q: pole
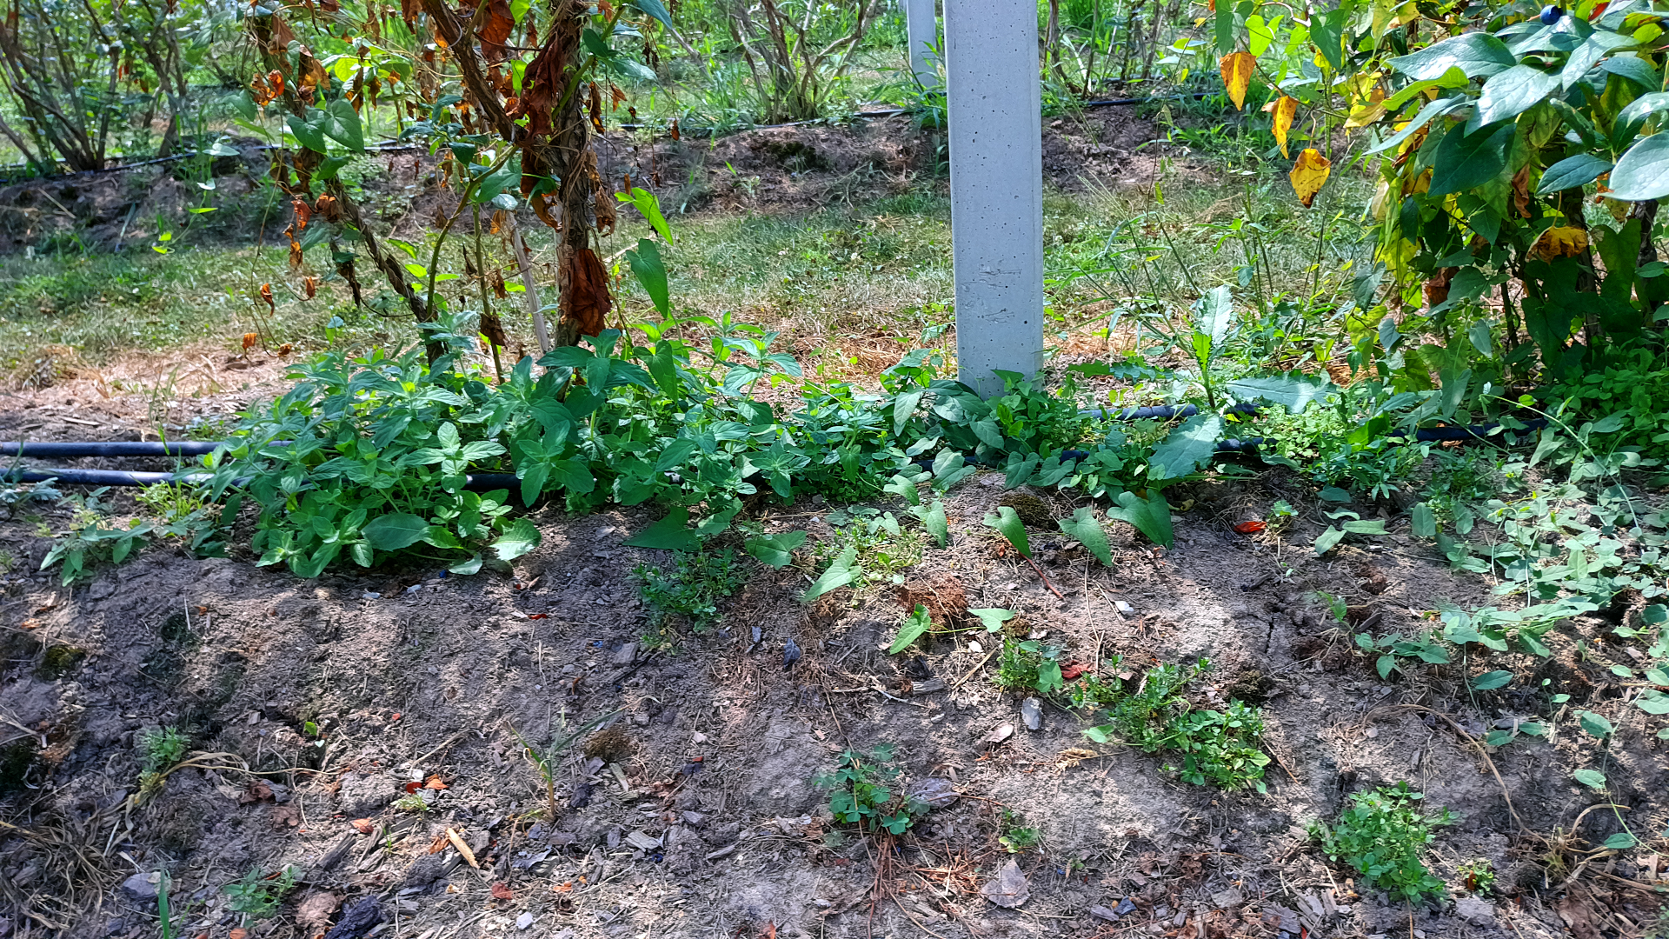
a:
[923,41,1071,418]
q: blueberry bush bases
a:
[1441,222,1669,498]
[363,266,693,582]
[7,81,196,211]
[1042,50,1159,130]
[713,46,866,161]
